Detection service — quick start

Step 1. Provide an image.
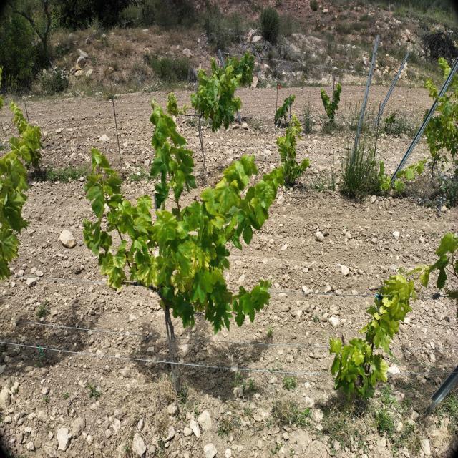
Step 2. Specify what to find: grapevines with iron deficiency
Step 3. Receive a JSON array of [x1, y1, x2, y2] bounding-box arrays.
[[321, 266, 420, 418], [80, 104, 282, 405]]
